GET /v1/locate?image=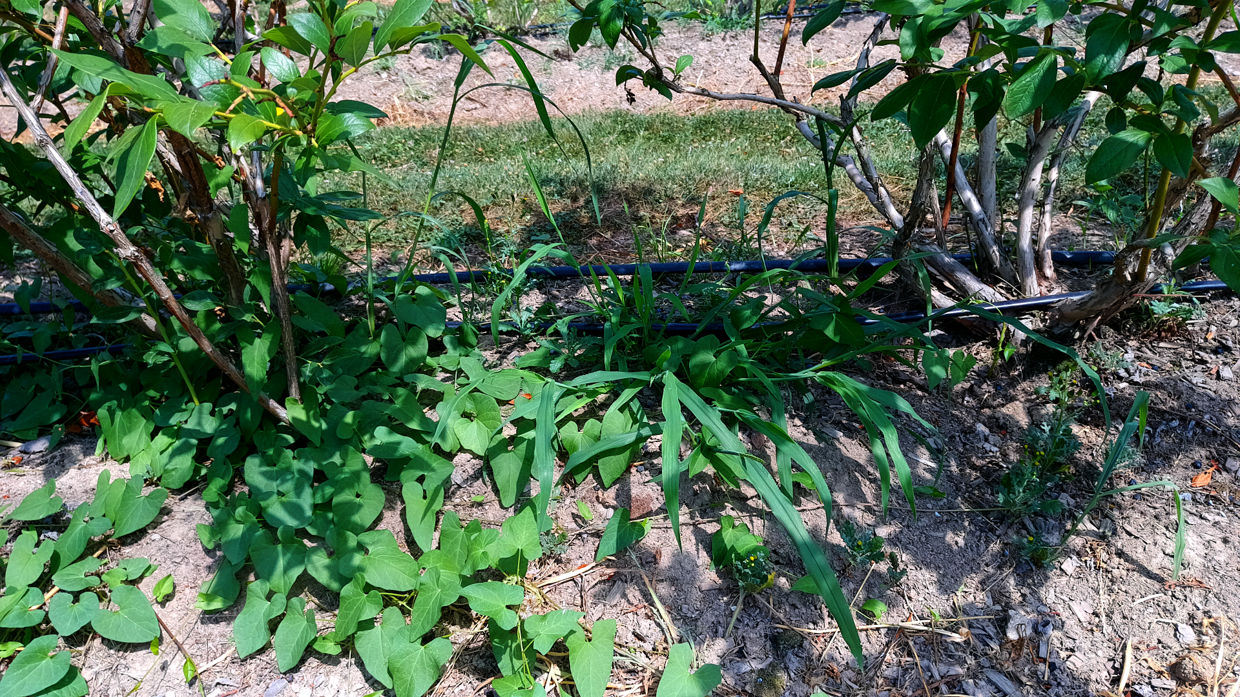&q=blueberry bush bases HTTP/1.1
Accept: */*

[50,179,344,494]
[832,126,1240,395]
